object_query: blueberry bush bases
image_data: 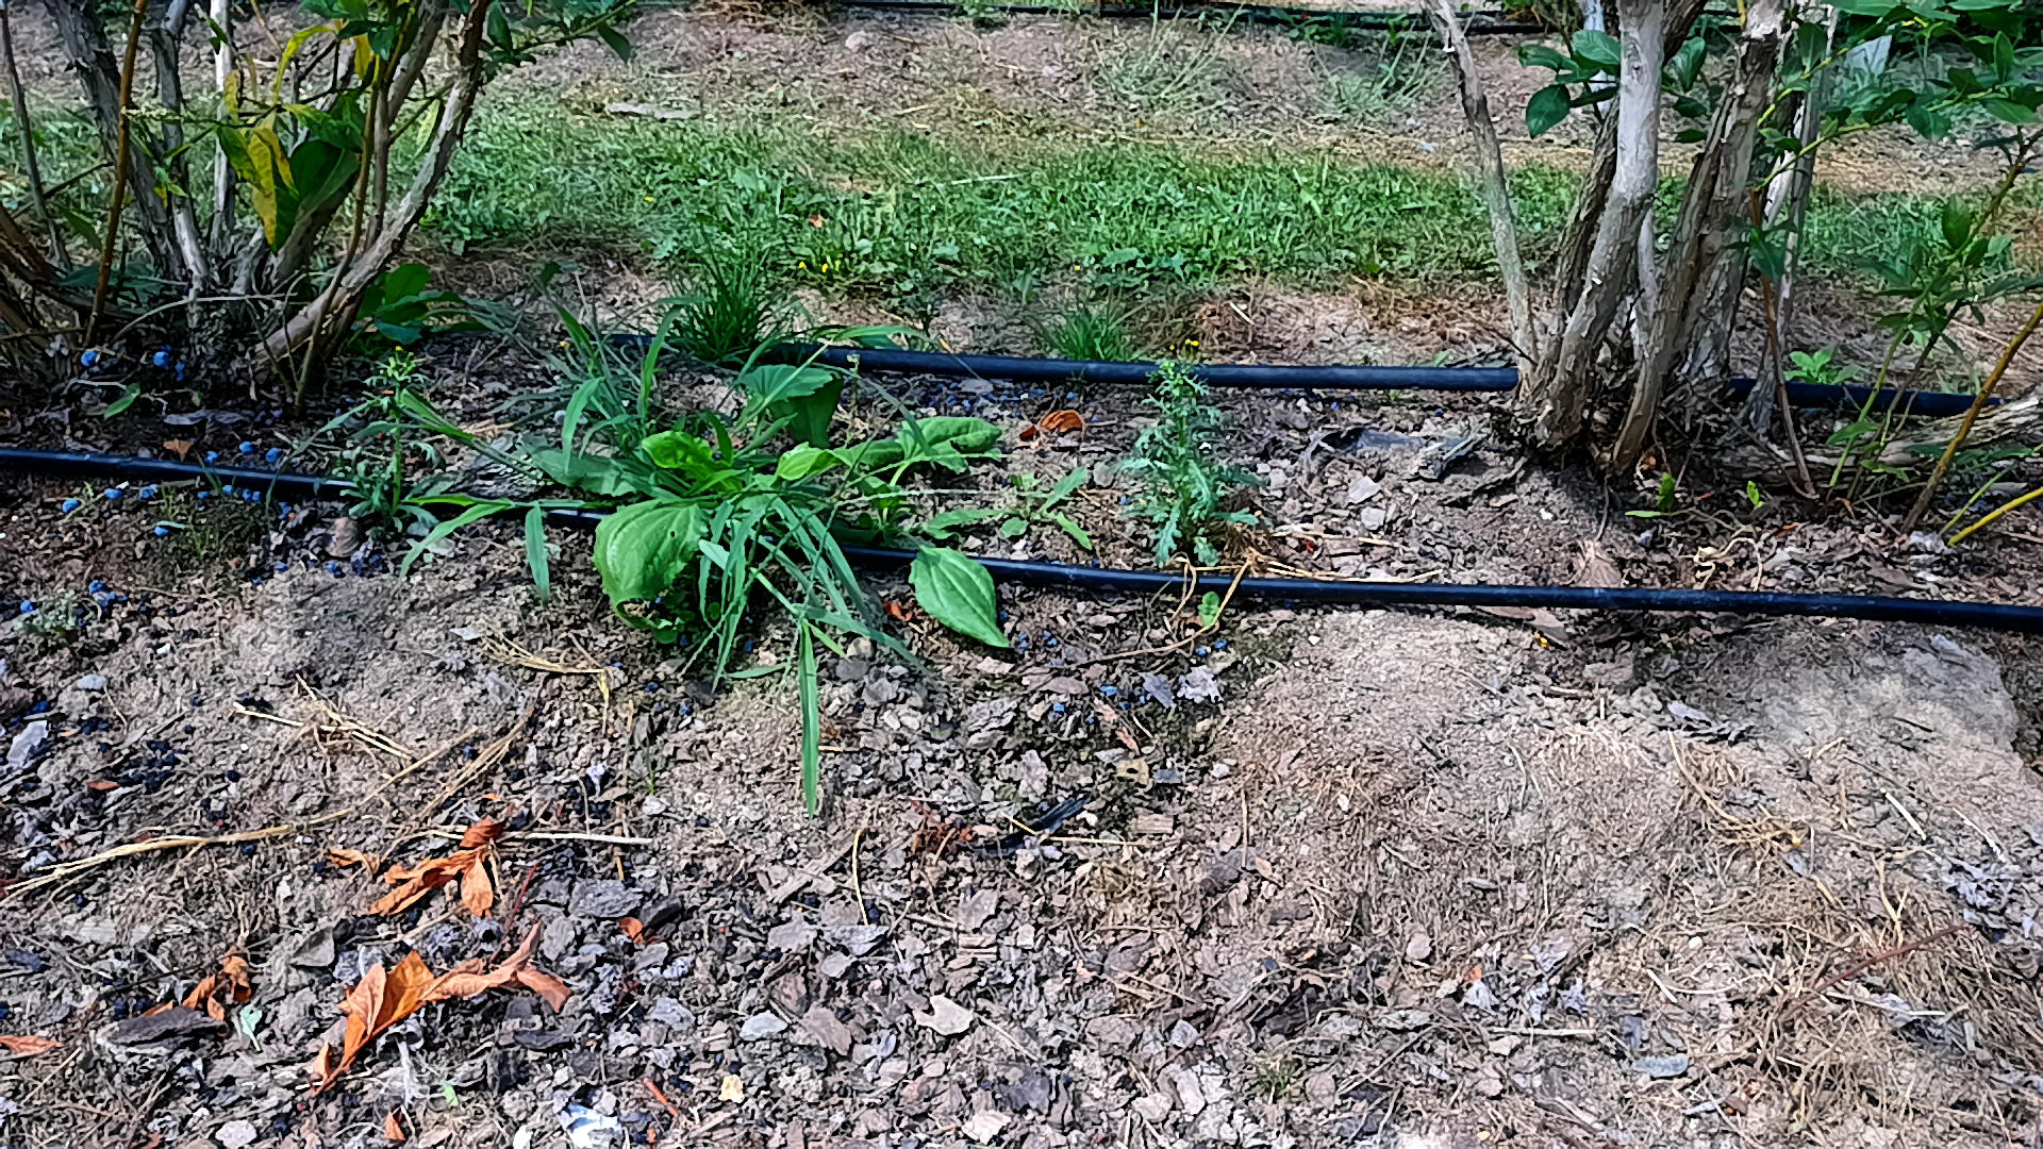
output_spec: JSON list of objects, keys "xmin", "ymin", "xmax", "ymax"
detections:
[
  {"xmin": 1424, "ymin": 114, "xmax": 1964, "ymax": 583},
  {"xmin": 7, "ymin": 145, "xmax": 459, "ymax": 513}
]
